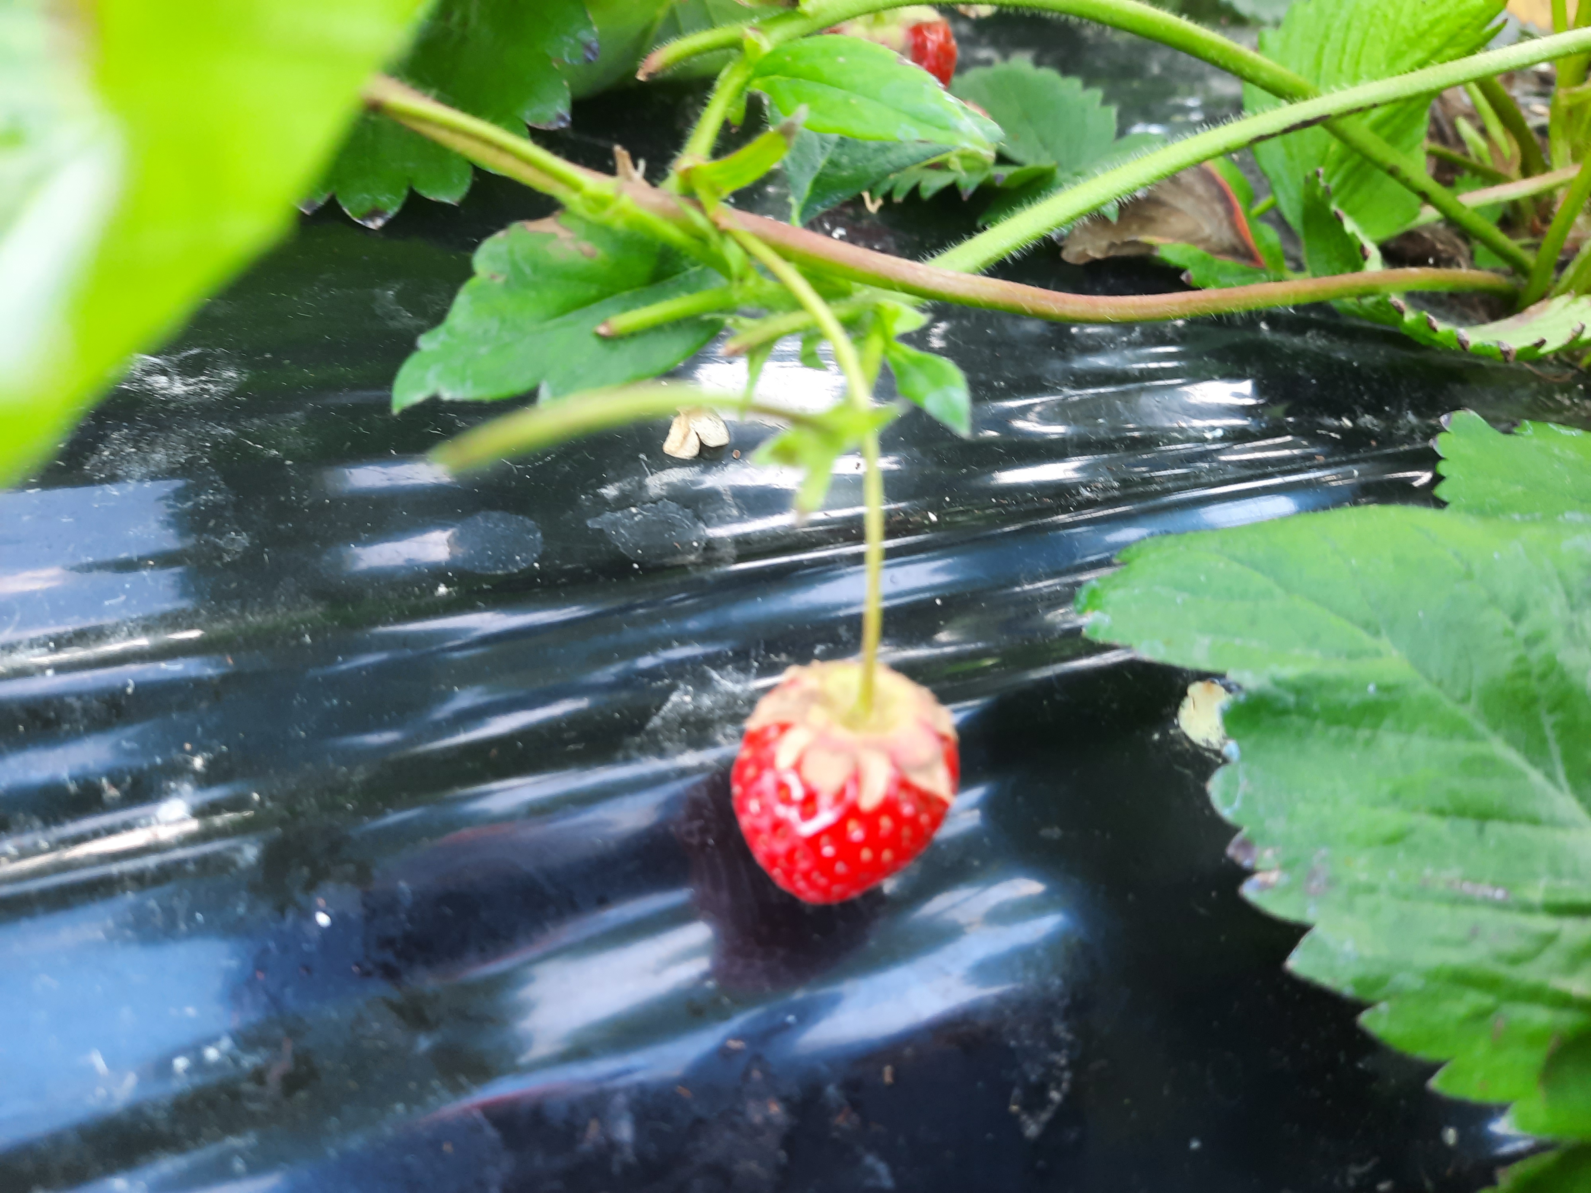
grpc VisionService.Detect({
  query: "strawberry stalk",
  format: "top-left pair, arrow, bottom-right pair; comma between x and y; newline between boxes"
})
837,336 -> 905,733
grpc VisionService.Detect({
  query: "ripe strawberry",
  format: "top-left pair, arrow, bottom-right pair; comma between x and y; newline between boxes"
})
735,677 -> 948,898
